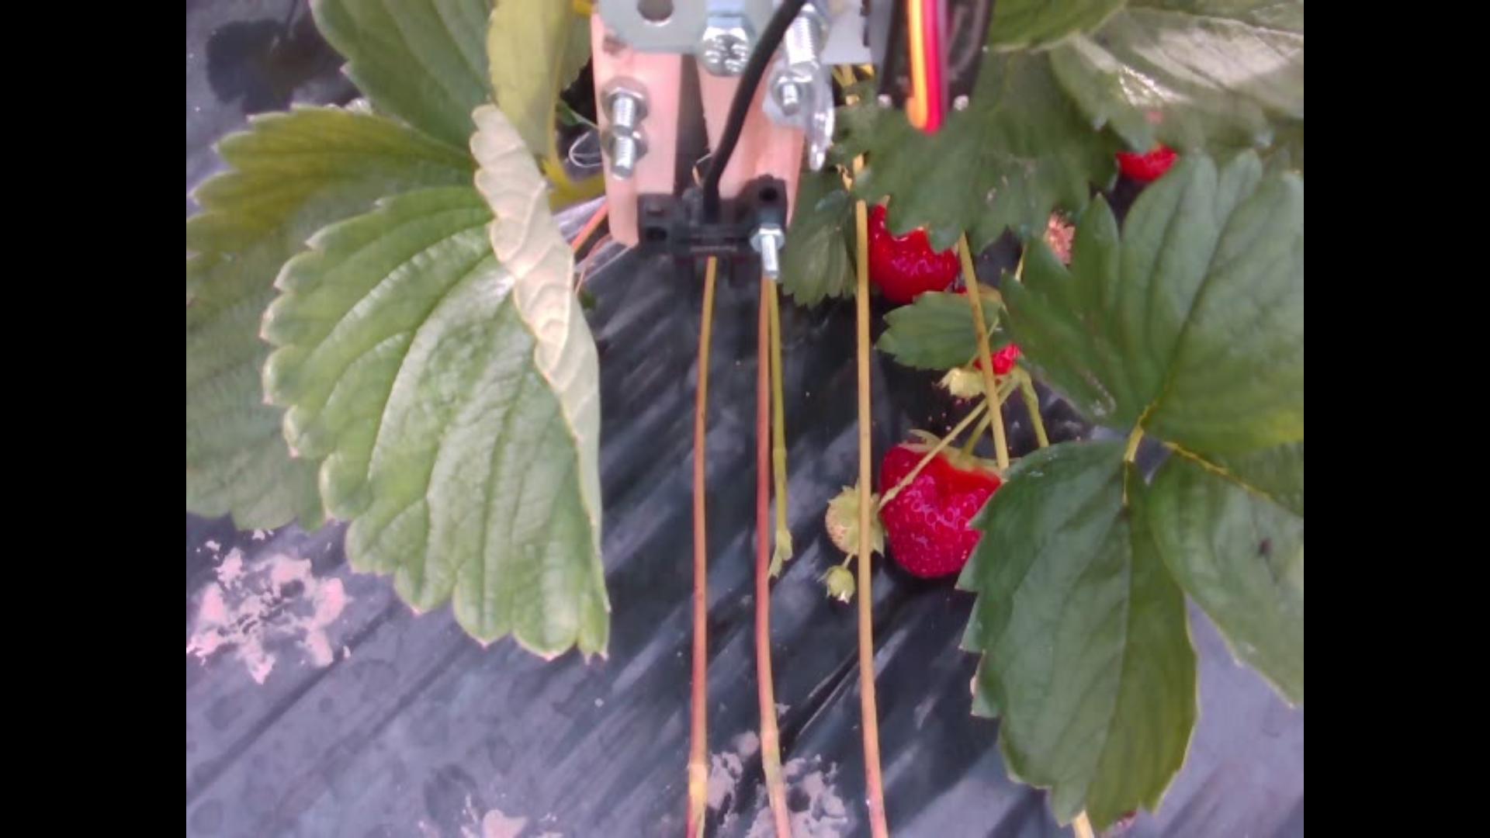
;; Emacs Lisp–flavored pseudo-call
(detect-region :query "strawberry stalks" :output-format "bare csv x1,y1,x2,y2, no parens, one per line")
849,458,900,520
949,409,989,478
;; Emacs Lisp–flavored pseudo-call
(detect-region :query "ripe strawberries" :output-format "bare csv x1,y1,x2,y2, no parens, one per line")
1102,123,1199,192
870,431,1015,585
860,192,974,312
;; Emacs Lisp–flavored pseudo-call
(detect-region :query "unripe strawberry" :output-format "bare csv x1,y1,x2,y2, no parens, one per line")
819,480,887,562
